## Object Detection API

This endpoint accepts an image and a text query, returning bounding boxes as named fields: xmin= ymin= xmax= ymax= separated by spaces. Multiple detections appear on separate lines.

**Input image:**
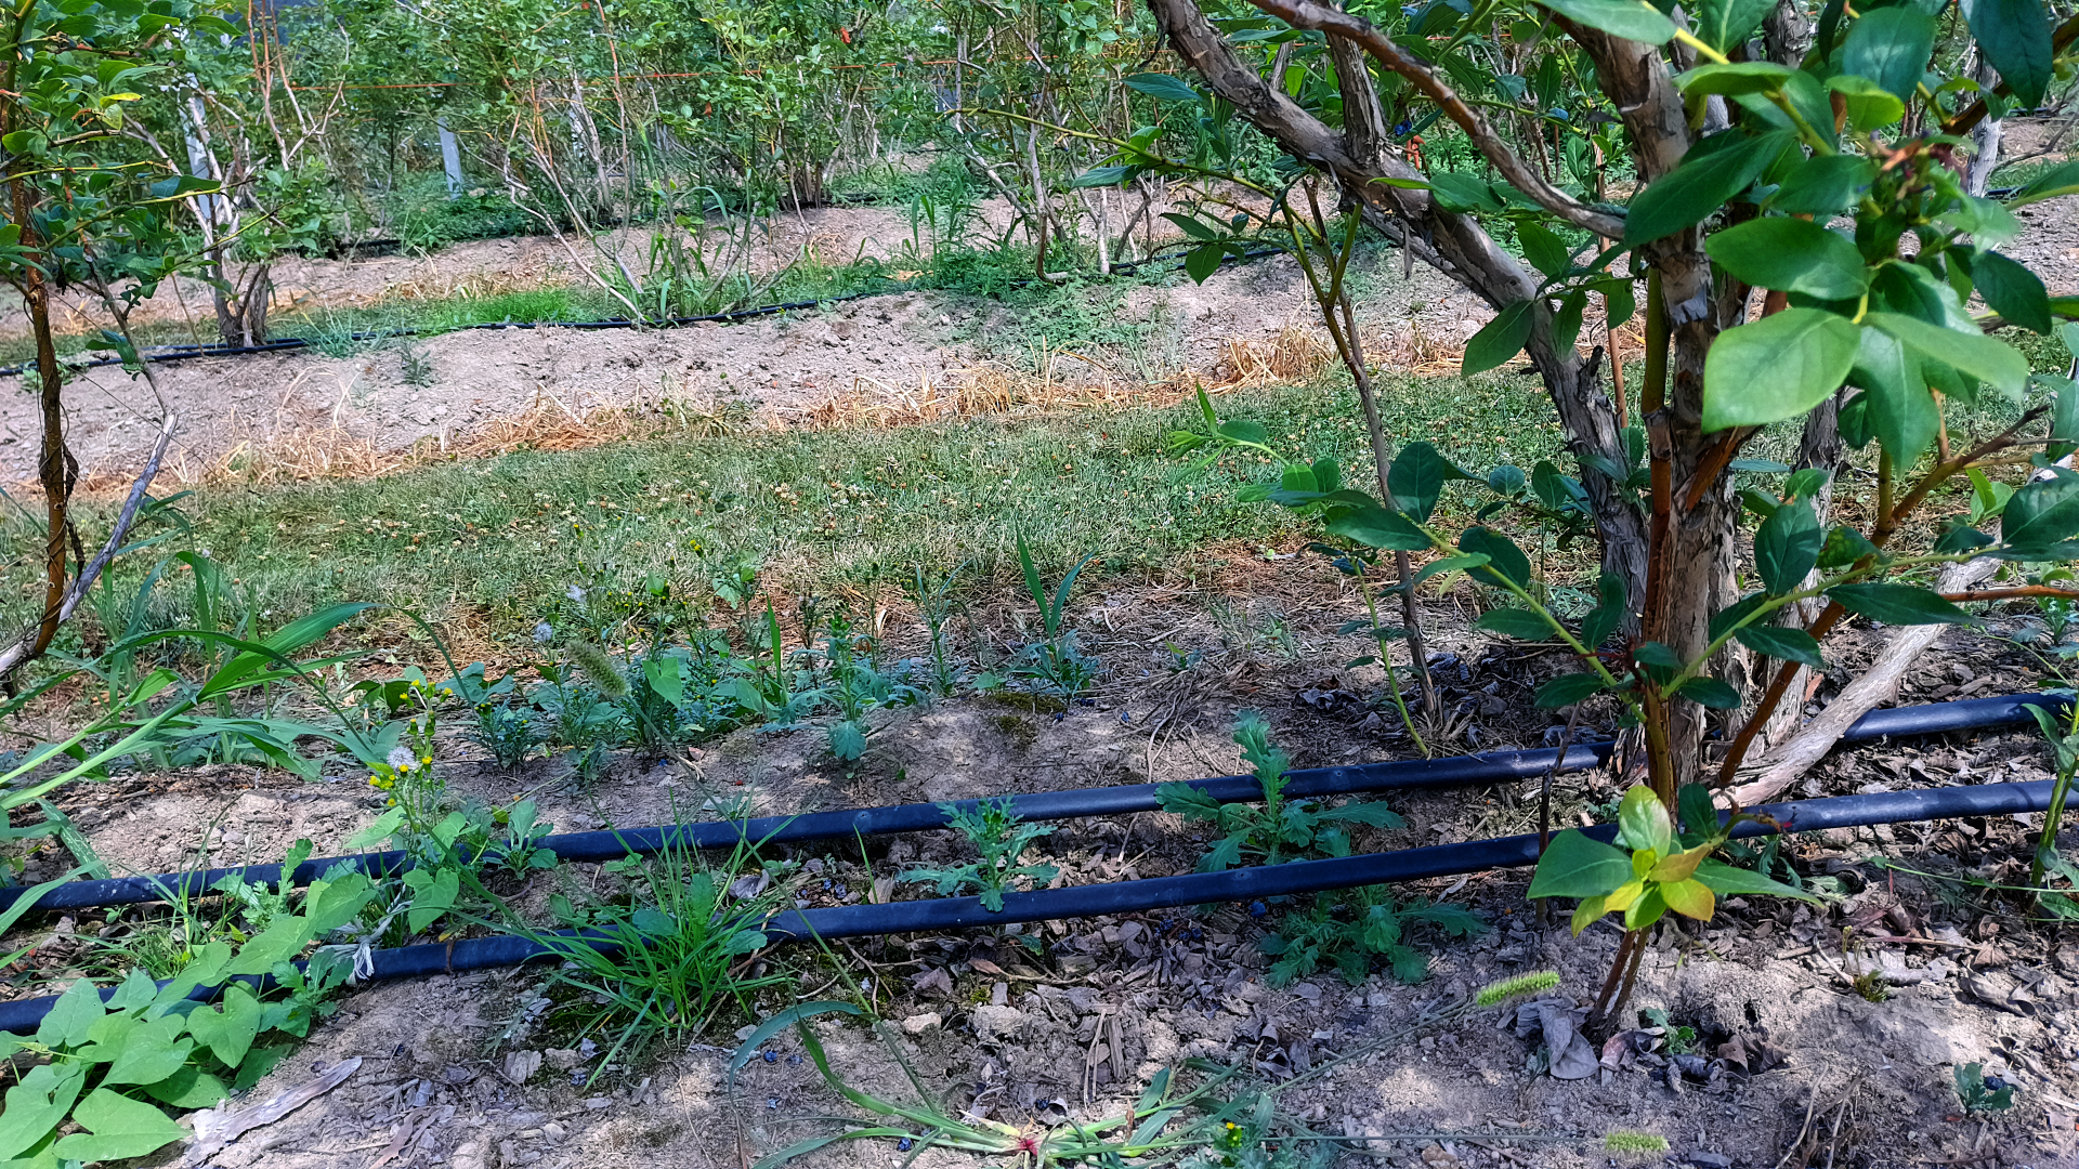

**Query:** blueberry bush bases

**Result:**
xmin=761 ymin=159 xmax=862 ymax=225
xmin=967 ymin=195 xmax=1184 ymax=329
xmin=596 ymin=257 xmax=780 ymax=363
xmin=1453 ymin=485 xmax=1989 ymax=1004
xmin=169 ymin=258 xmax=324 ymax=383
xmin=0 ymin=516 xmax=144 ymax=853
xmin=499 ymin=180 xmax=644 ymax=249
